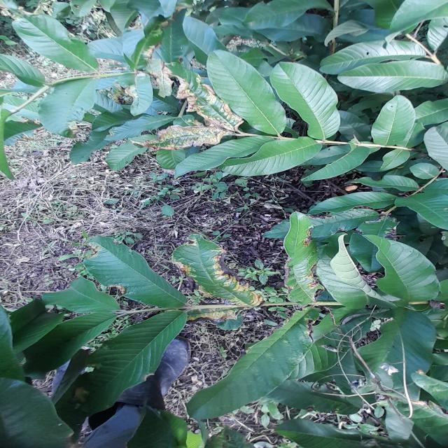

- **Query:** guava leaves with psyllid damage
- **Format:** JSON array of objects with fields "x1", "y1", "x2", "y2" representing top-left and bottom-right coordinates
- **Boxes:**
[
  {"x1": 126, "y1": 122, "x2": 243, "y2": 155},
  {"x1": 157, "y1": 62, "x2": 254, "y2": 134},
  {"x1": 164, "y1": 234, "x2": 268, "y2": 309}
]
